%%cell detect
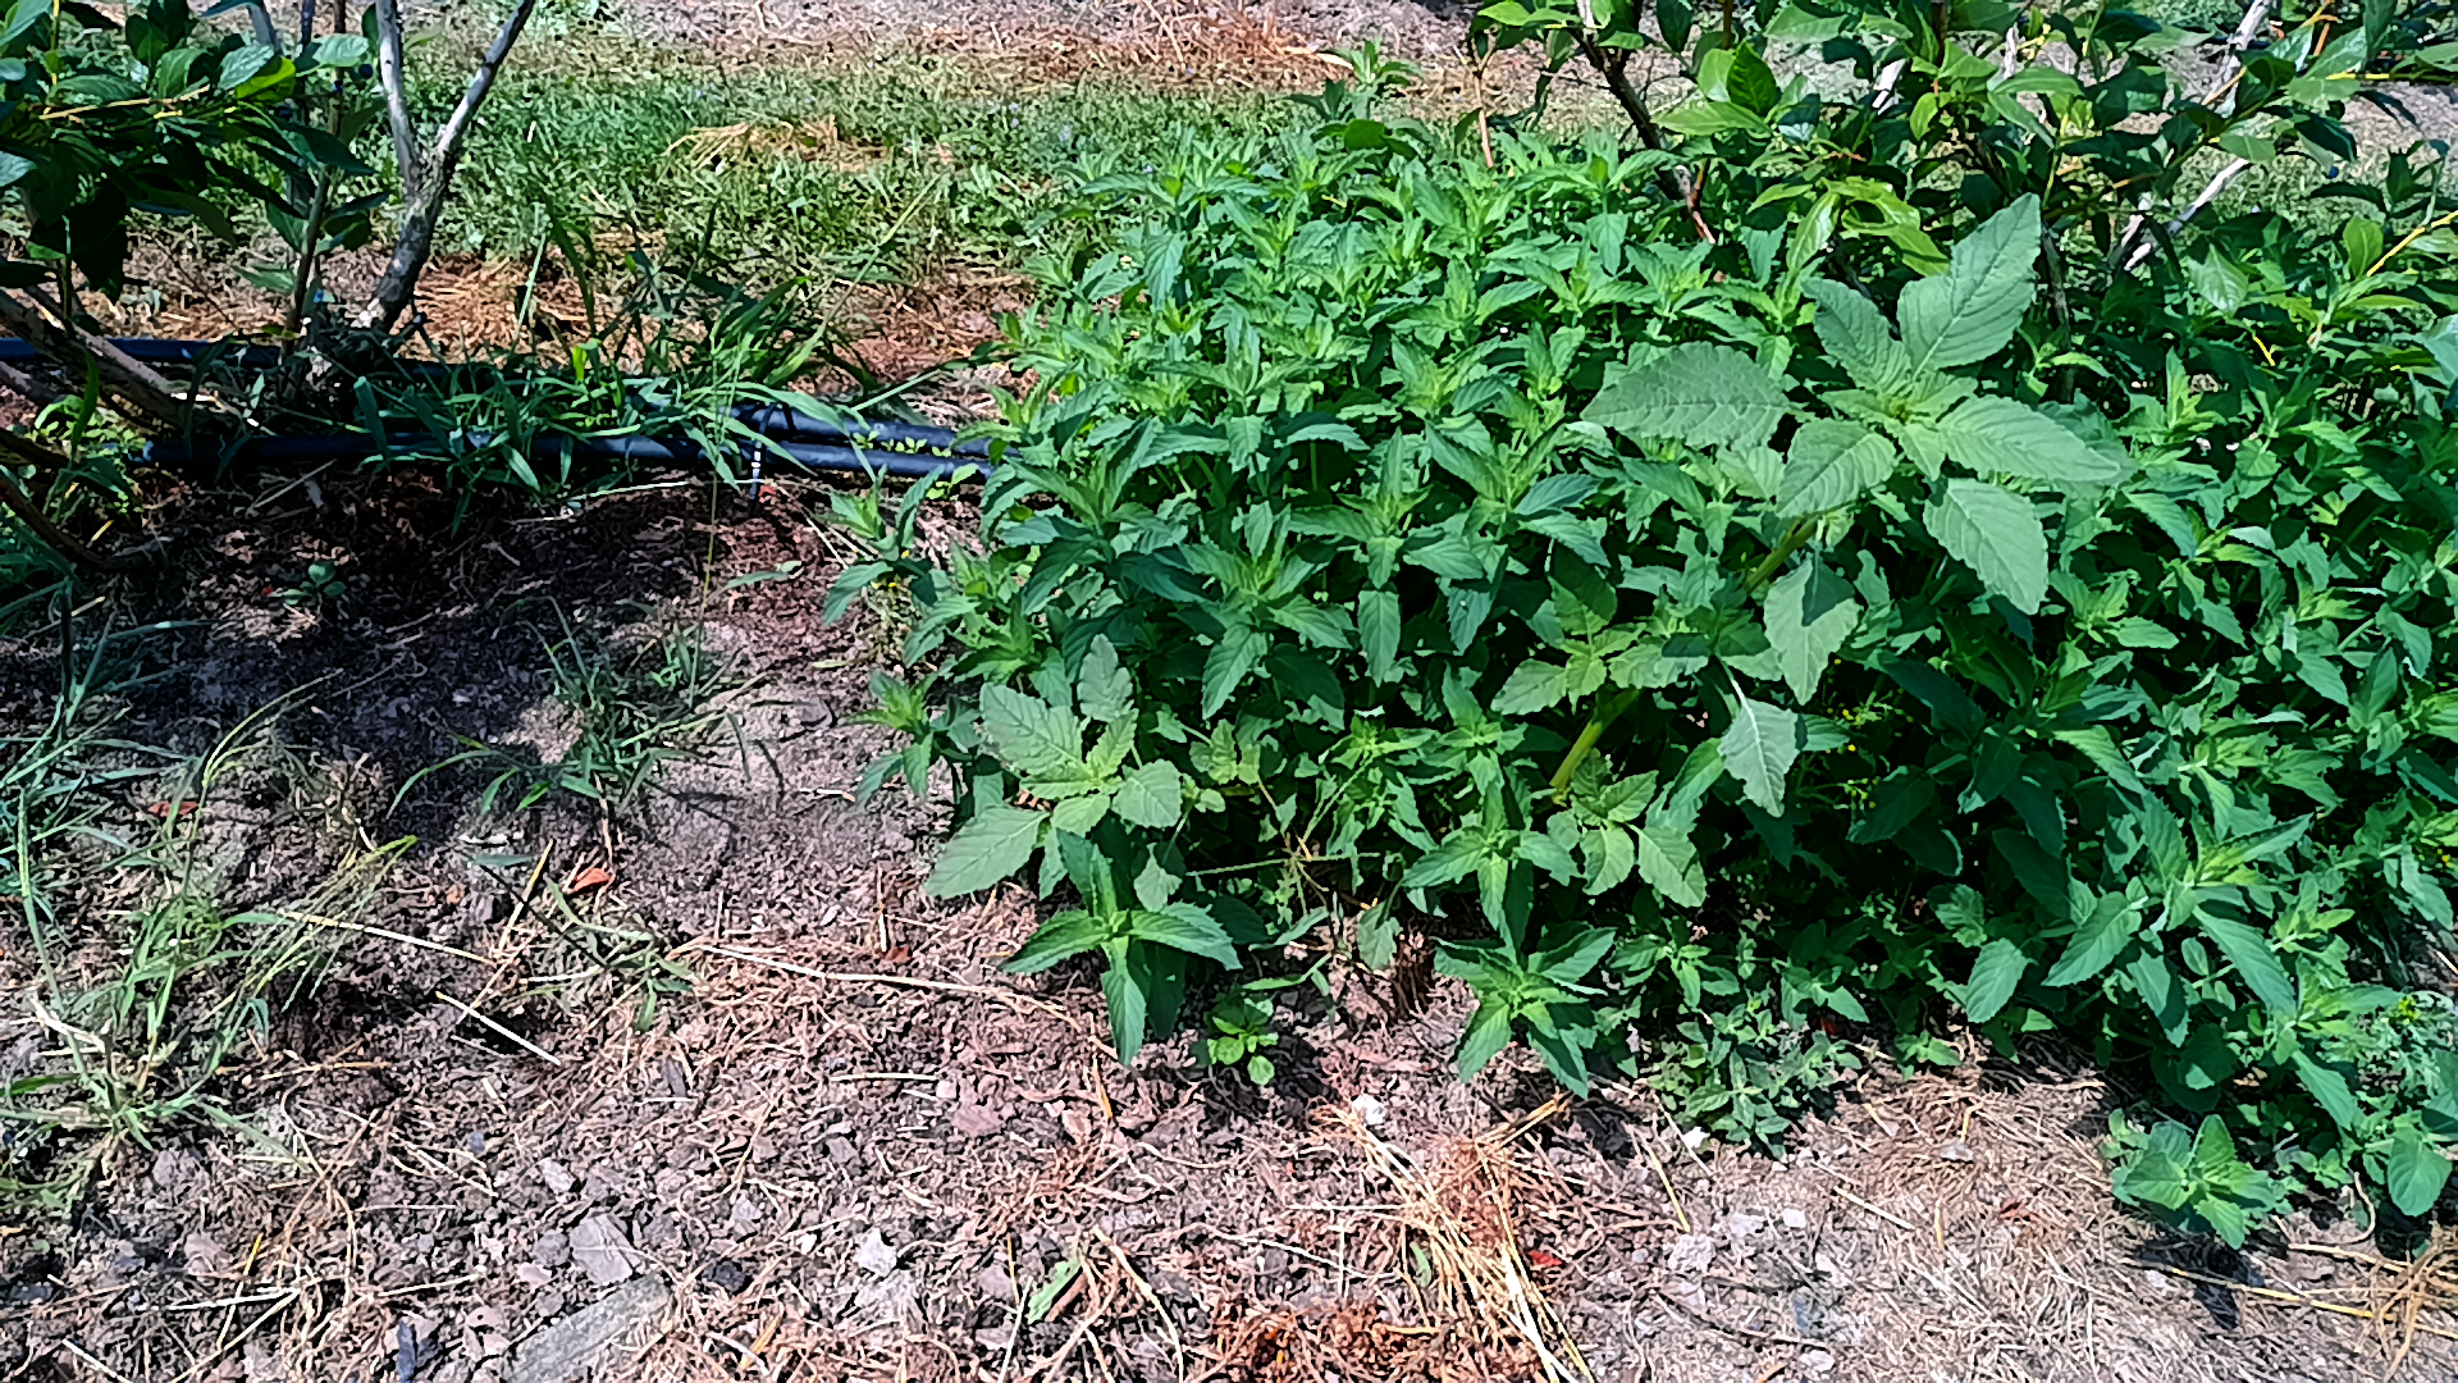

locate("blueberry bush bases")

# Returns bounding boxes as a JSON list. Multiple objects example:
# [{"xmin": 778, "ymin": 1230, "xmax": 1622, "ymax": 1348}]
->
[
  {"xmin": 68, "ymin": 133, "xmax": 536, "ymax": 624},
  {"xmin": 1559, "ymin": 37, "xmax": 2285, "ymax": 382}
]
